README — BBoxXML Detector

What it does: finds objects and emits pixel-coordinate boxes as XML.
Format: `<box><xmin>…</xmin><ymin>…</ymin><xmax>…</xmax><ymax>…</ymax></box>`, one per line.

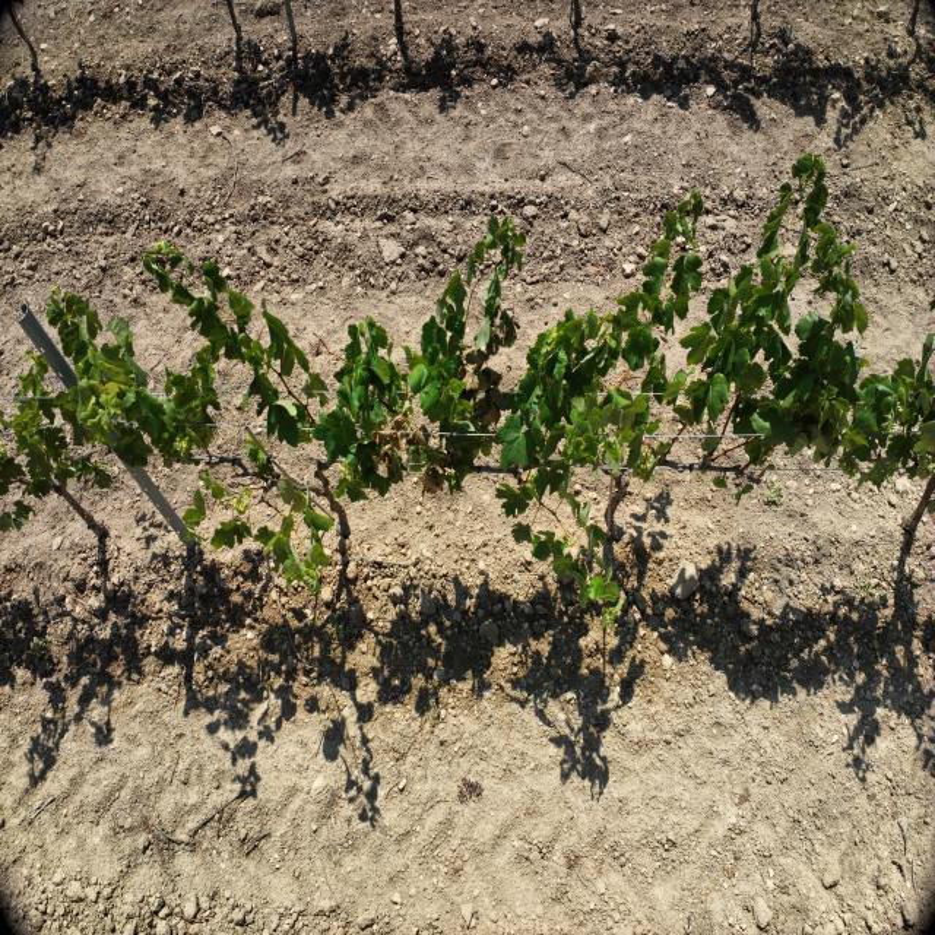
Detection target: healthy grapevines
<box><xmin>0</xmin><ymin>267</ymin><xmax>137</xmax><ymax>580</ymax></box>
<box><xmin>814</xmin><ymin>278</ymin><xmax>935</xmax><ymax>609</ymax></box>
<box><xmin>405</xmin><ymin>144</ymin><xmax>818</xmax><ymax>639</ymax></box>
<box><xmin>137</xmin><ymin>232</ymin><xmax>424</xmax><ymax>603</ymax></box>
